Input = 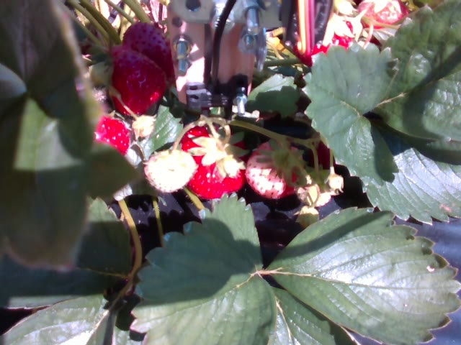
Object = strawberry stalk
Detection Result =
[217,111,238,157]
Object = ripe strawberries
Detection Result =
[124,28,177,77]
[103,52,173,113]
[90,115,136,157]
[250,147,303,193]
[186,132,247,196]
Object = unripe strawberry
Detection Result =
[143,146,193,196]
